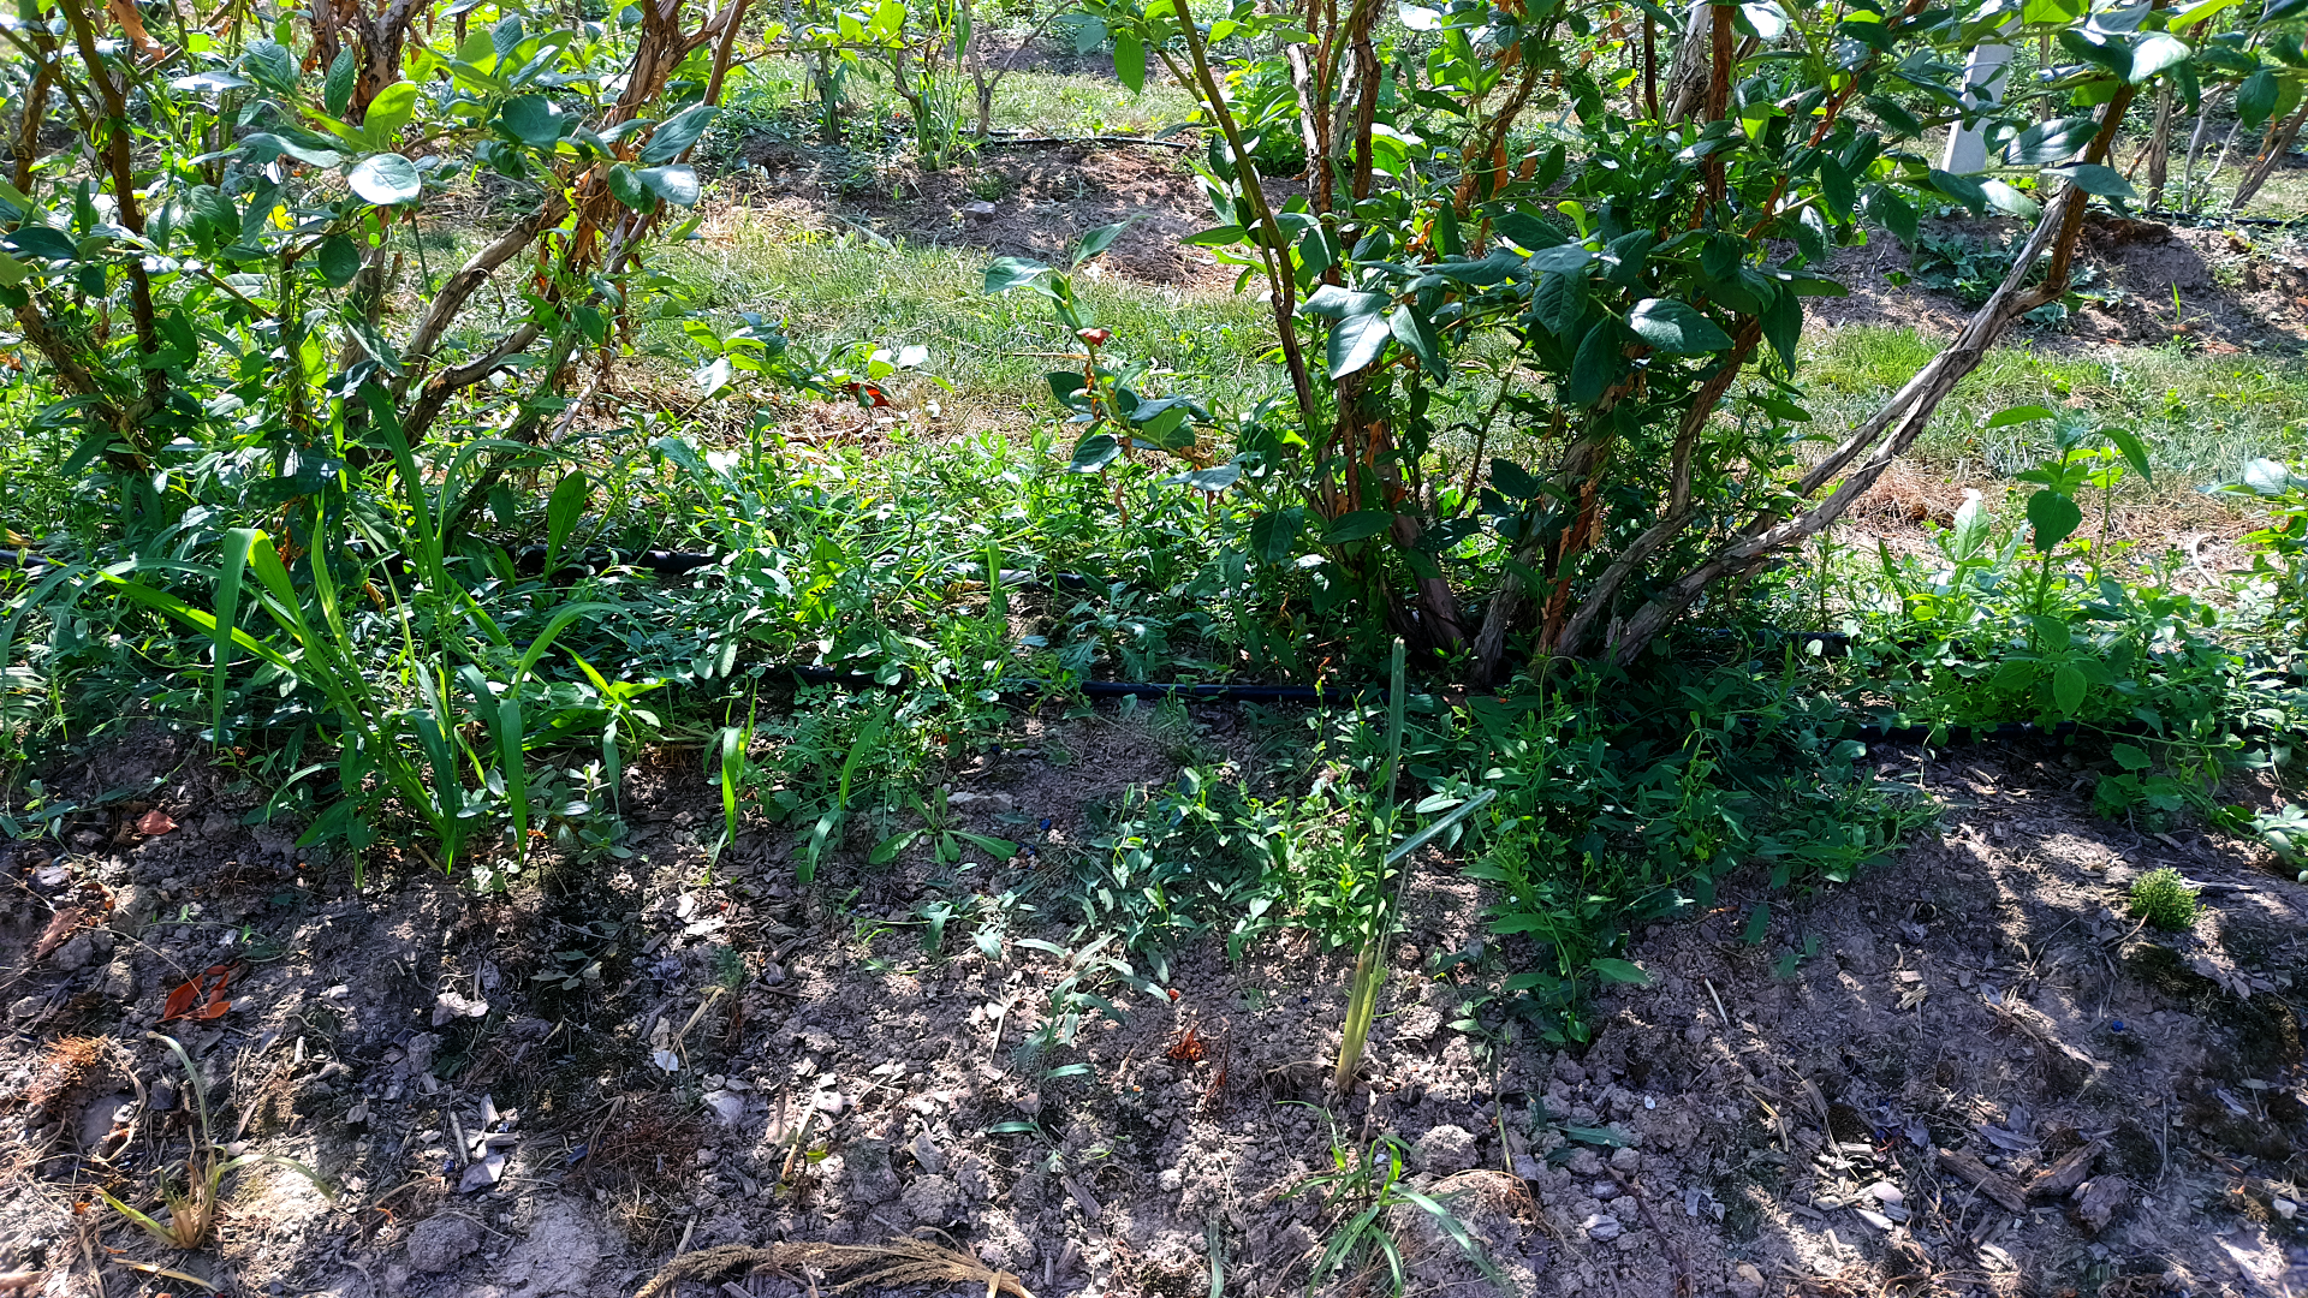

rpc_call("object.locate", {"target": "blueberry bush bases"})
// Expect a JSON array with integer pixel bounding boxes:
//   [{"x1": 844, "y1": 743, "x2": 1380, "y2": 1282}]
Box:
[
  {"x1": 1225, "y1": 362, "x2": 1887, "y2": 823},
  {"x1": 22, "y1": 305, "x2": 593, "y2": 737},
  {"x1": 780, "y1": 64, "x2": 1012, "y2": 170}
]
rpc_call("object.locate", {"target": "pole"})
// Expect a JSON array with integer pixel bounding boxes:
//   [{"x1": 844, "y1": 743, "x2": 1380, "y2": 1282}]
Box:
[{"x1": 1931, "y1": 30, "x2": 2010, "y2": 206}]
